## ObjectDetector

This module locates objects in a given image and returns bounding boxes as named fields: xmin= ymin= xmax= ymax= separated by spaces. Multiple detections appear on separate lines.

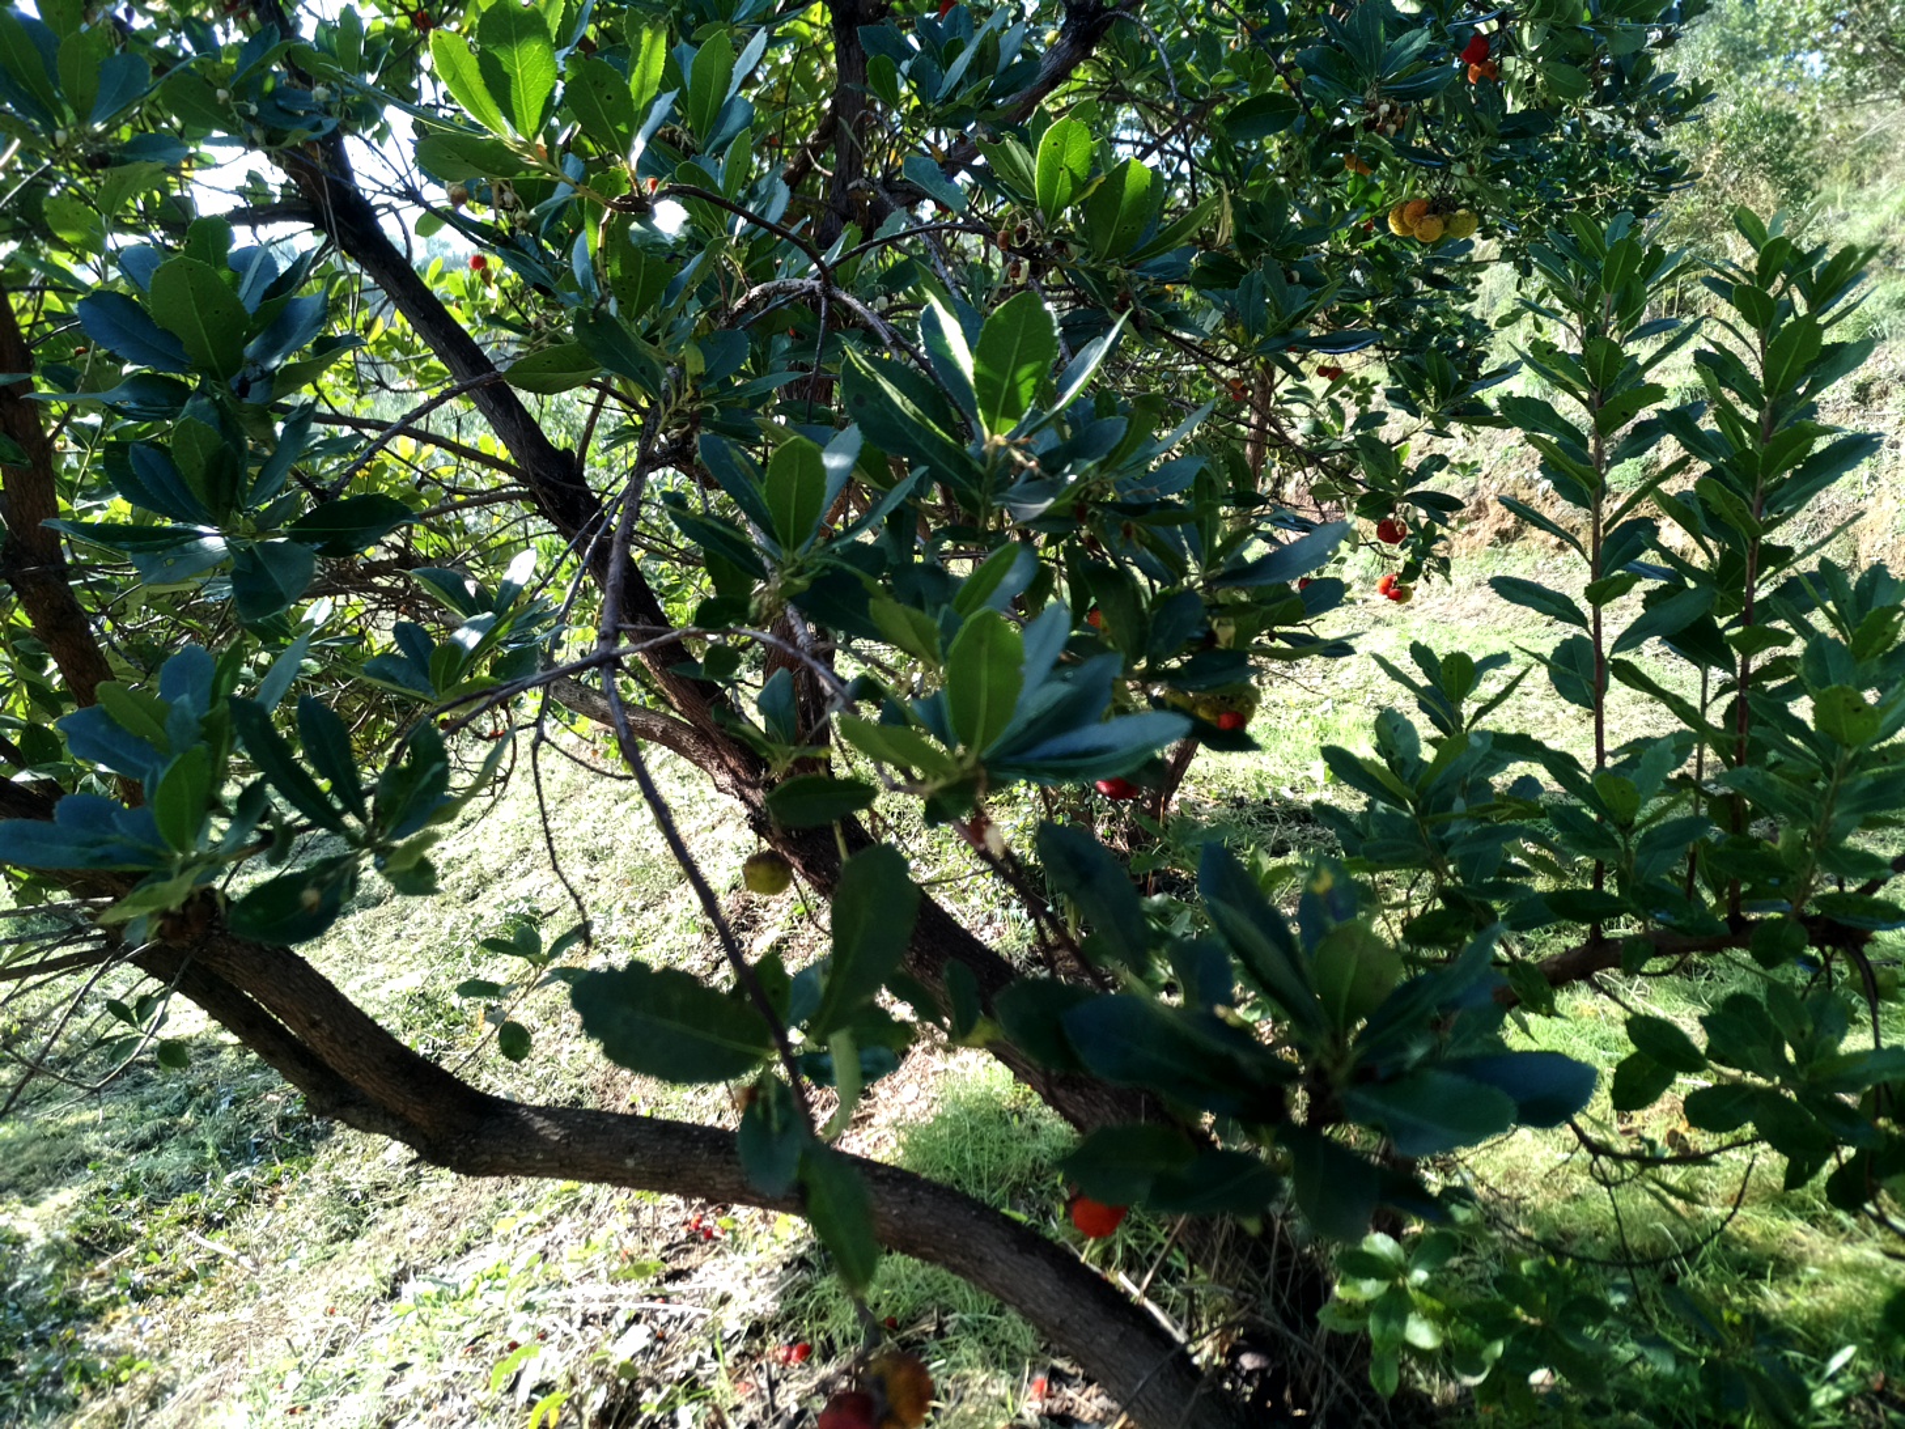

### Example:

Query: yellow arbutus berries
xmin=1414 ymin=214 xmax=1445 ymax=245
xmin=1344 ymin=152 xmax=1358 ymax=169
xmin=1404 ymin=197 xmax=1427 ymax=228
xmin=1228 ymin=377 xmax=1243 ymax=390
xmin=1388 ymin=206 xmax=1415 ymax=237
xmin=1356 ymin=158 xmax=1371 ymax=175
xmin=861 ymin=1350 xmax=939 ymax=1427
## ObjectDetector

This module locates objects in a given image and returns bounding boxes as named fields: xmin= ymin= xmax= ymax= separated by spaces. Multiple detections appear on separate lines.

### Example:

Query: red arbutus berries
xmin=1468 ymin=59 xmax=1498 ymax=85
xmin=1233 ymin=386 xmax=1248 ymax=401
xmin=470 ymin=255 xmax=488 ymax=270
xmin=1072 ymin=1192 xmax=1129 ymax=1239
xmin=1216 ymin=710 xmax=1247 ymax=735
xmin=415 ymin=11 xmax=436 ymax=30
xmin=815 ymin=1389 xmax=878 ymax=1429
xmin=1377 ymin=517 xmax=1407 ymax=545
xmin=1377 ymin=575 xmax=1397 ymax=594
xmin=1095 ymin=771 xmax=1140 ymax=801
xmin=1388 ymin=587 xmax=1401 ymax=600
xmin=1329 ymin=366 xmax=1342 ymax=380
xmin=1461 ymin=35 xmax=1488 ymax=64
xmin=1317 ymin=364 xmax=1329 ymax=377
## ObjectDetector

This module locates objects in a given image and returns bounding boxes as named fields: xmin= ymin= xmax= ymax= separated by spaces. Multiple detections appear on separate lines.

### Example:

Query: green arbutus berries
xmin=1450 ymin=208 xmax=1481 ymax=238
xmin=742 ymin=849 xmax=794 ymax=896
xmin=447 ymin=183 xmax=468 ymax=205
xmin=1393 ymin=585 xmax=1413 ymax=604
